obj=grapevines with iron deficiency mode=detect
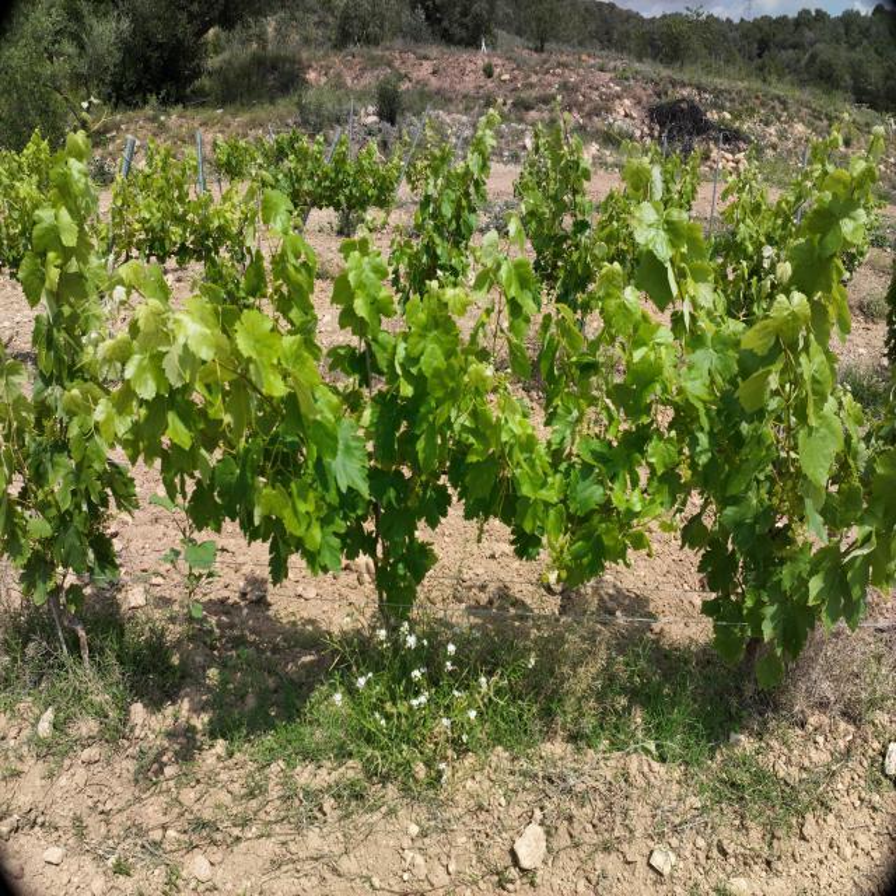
[0,211,171,694]
[123,220,574,701]
[561,160,896,730]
